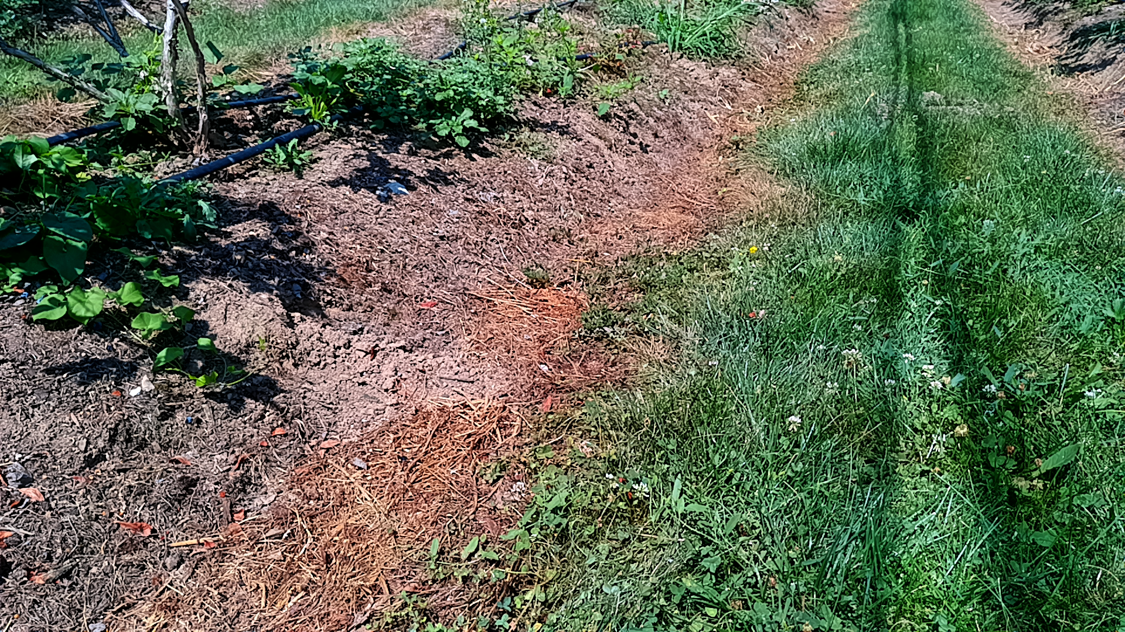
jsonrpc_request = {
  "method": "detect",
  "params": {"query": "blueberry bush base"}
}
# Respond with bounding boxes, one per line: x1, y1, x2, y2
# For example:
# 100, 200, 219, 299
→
89, 42, 266, 174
